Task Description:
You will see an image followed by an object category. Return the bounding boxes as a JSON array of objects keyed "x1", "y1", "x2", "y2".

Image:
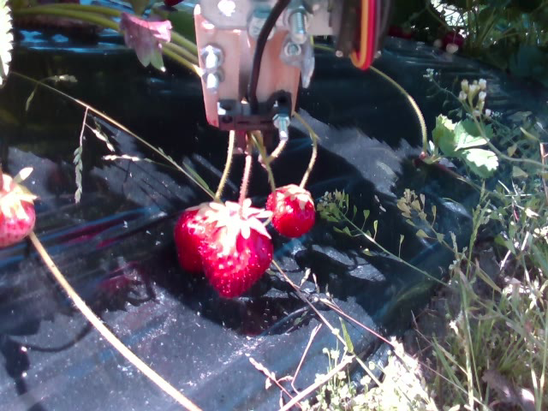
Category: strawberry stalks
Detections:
[
  {"x1": 227, "y1": 150, "x2": 257, "y2": 230},
  {"x1": 290, "y1": 138, "x2": 318, "y2": 205},
  {"x1": 206, "y1": 141, "x2": 238, "y2": 221}
]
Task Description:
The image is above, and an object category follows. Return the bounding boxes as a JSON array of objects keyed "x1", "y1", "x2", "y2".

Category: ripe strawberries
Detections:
[
  {"x1": 0, "y1": 178, "x2": 34, "y2": 244},
  {"x1": 175, "y1": 206, "x2": 205, "y2": 261},
  {"x1": 272, "y1": 190, "x2": 313, "y2": 229},
  {"x1": 209, "y1": 227, "x2": 270, "y2": 290}
]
